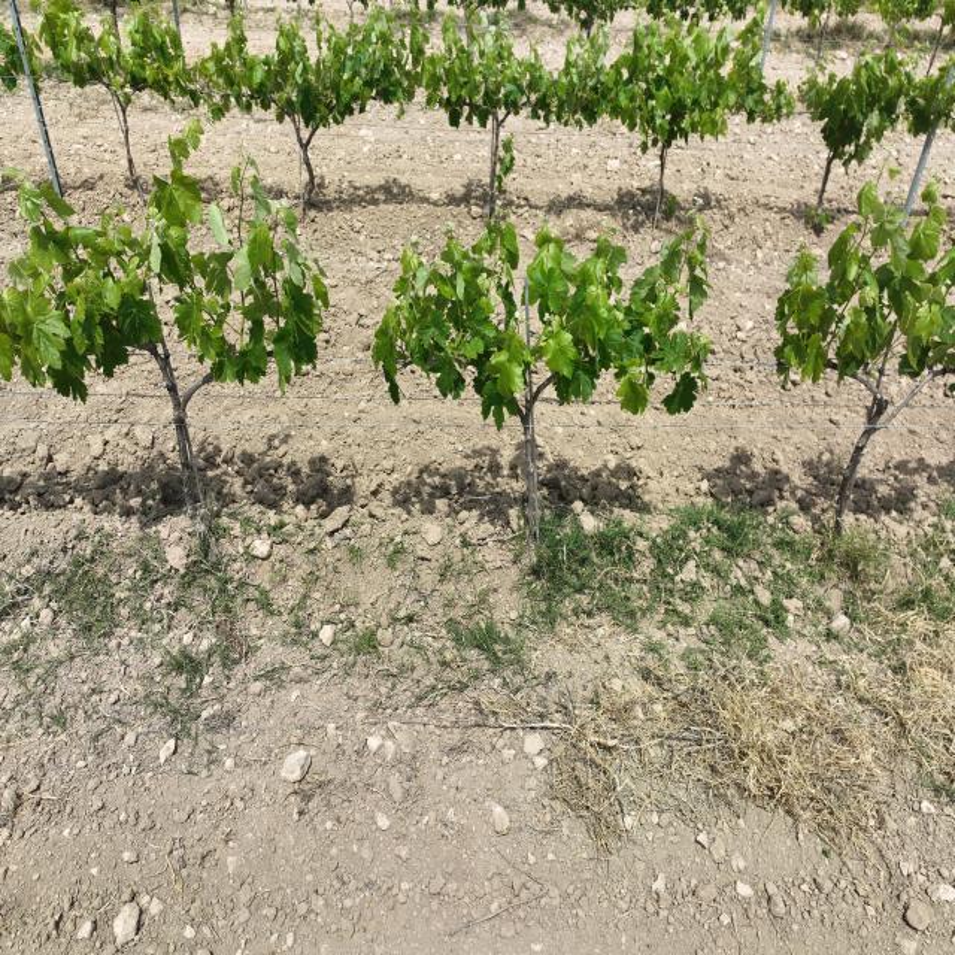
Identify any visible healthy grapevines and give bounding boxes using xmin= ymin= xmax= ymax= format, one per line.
xmin=764 ymin=173 xmax=955 ymax=576
xmin=0 ymin=144 xmax=339 ymax=545
xmin=367 ymin=210 xmax=713 ymax=563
